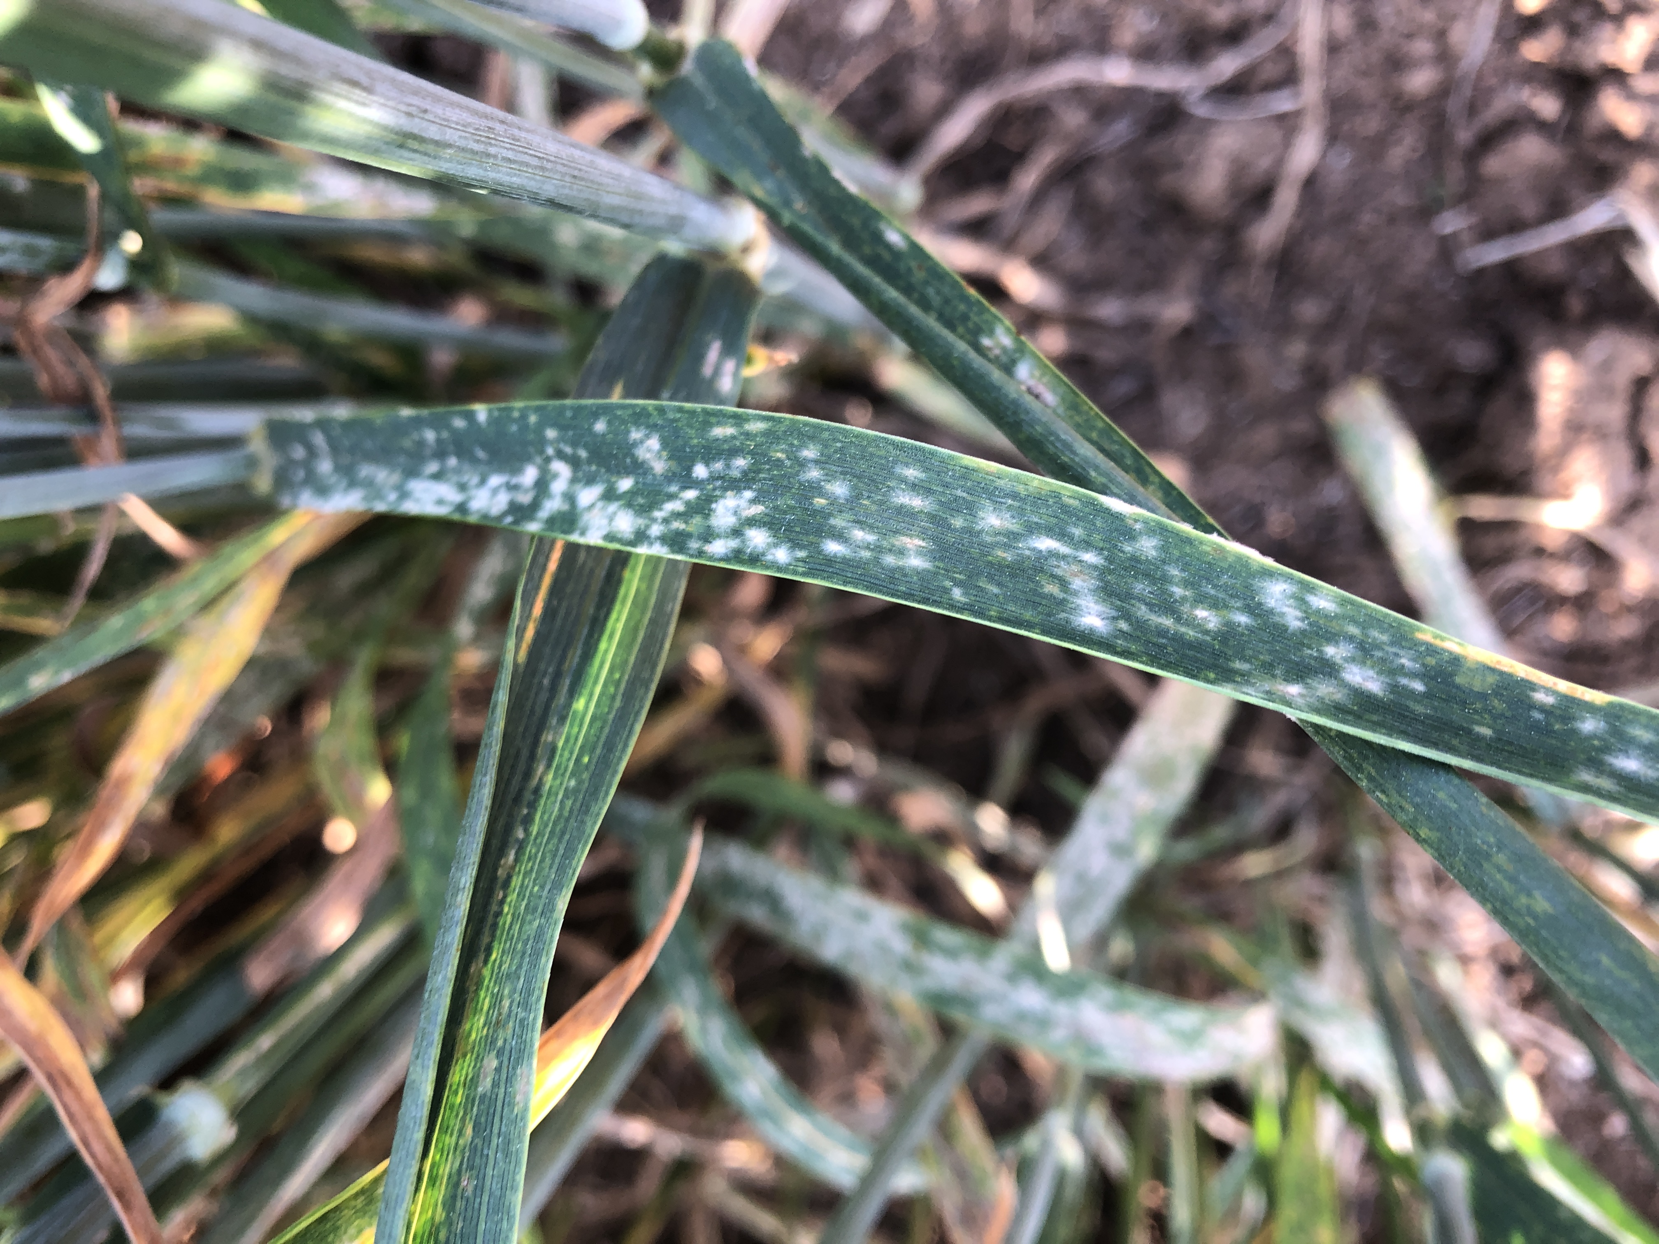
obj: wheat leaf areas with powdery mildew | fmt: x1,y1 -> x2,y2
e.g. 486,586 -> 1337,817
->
707,835 -> 1263,1093
993,664 -> 1267,956
277,383 -> 1649,817
597,869 -> 938,1175
837,183 -> 1103,435
671,314 -> 776,394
